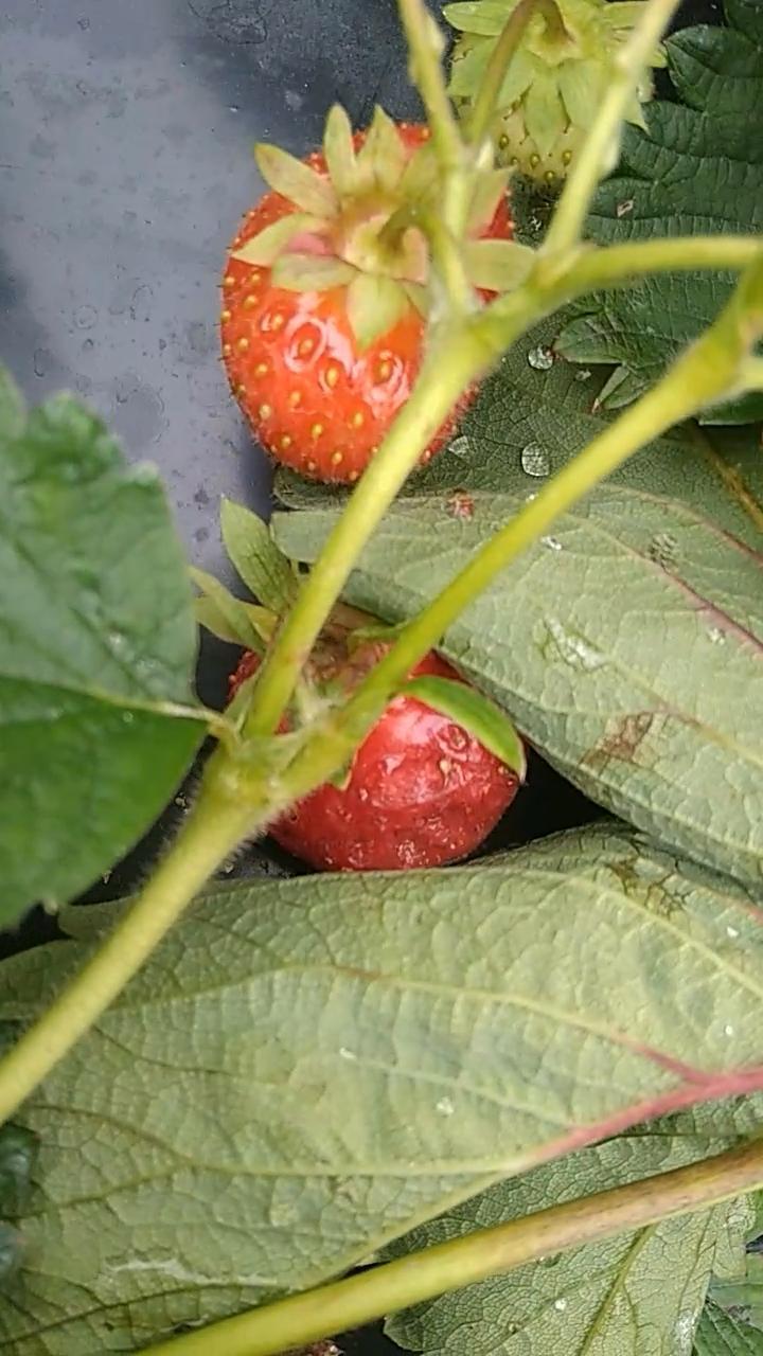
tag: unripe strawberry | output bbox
[429,6,649,182]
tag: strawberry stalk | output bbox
[367,212,496,350]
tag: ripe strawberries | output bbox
[218,596,517,884]
[209,147,542,497]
